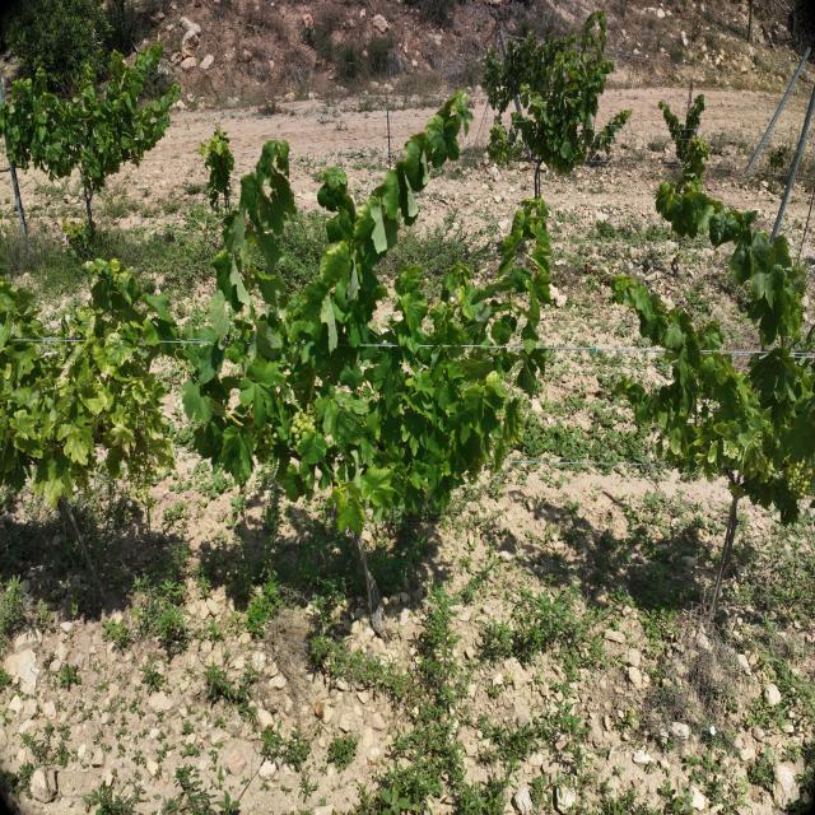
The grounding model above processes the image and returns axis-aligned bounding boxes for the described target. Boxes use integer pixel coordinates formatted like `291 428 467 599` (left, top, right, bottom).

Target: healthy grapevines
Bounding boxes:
600 219 815 660
187 128 568 664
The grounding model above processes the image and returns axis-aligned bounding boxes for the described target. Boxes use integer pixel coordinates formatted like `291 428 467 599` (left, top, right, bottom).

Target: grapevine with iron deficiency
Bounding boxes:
0 248 186 623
